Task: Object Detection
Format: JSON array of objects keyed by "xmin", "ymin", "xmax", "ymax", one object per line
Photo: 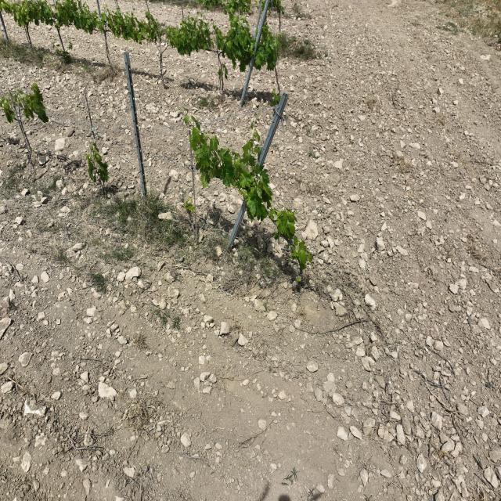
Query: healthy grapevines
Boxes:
[
  {"xmin": 0, "ymin": 76, "xmax": 52, "ymax": 165},
  {"xmin": 81, "ymin": 135, "xmax": 116, "ymax": 208},
  {"xmin": 180, "ymin": 121, "xmax": 325, "ymax": 273}
]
